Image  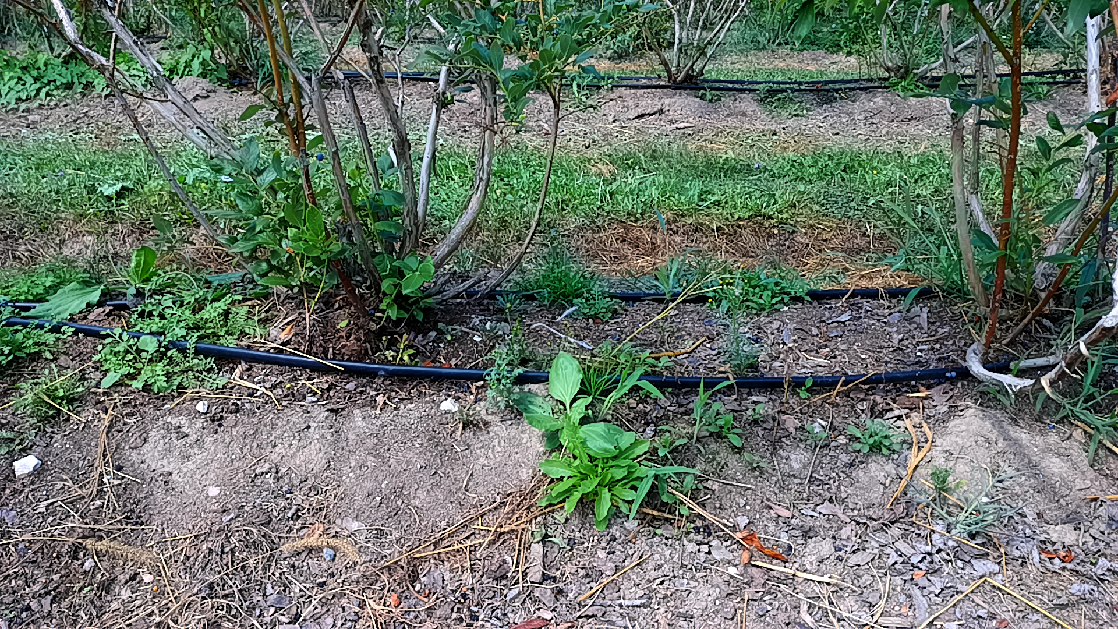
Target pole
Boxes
[50,1,83,57]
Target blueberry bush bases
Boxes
[639,42,731,101]
[867,43,940,97]
[262,173,539,396]
[946,206,1118,431]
